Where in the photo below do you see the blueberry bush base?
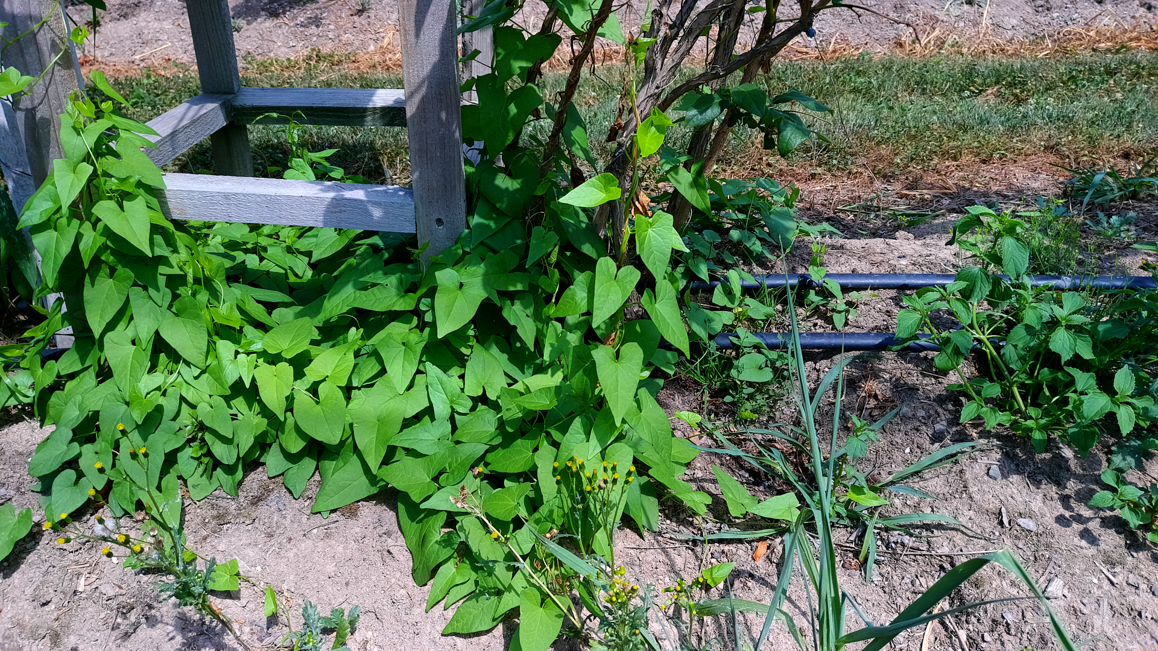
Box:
[492,122,720,405]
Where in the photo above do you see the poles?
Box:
[383,13,490,268]
[167,8,265,170]
[0,4,93,271]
